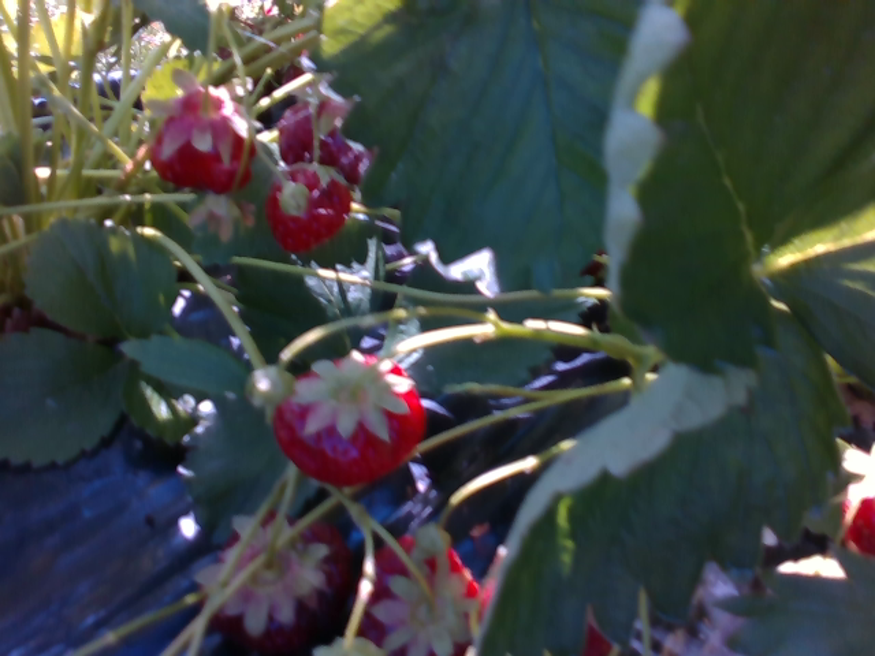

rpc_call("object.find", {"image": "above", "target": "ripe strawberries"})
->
[359,539,488,652]
[203,524,356,634]
[265,173,360,247]
[152,101,258,188]
[274,358,429,494]
[282,89,370,181]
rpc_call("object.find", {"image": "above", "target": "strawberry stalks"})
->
[261,477,300,595]
[375,519,456,621]
[324,337,393,411]
[193,22,225,142]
